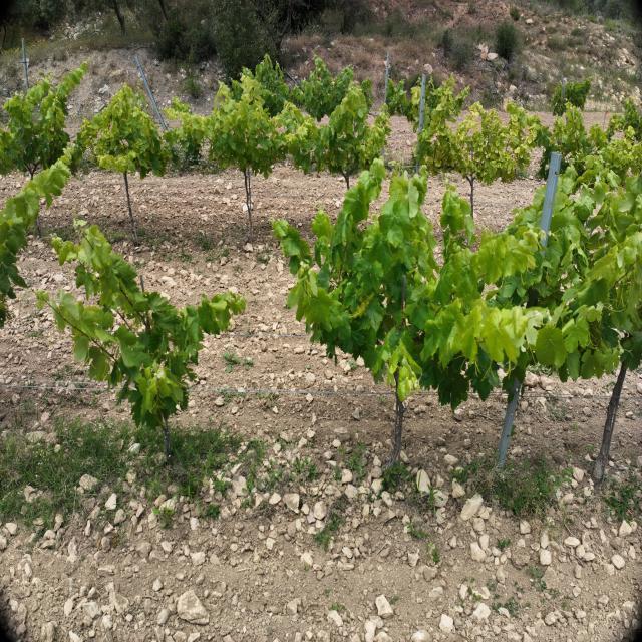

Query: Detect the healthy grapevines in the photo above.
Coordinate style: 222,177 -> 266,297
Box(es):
530,156 -> 642,490
25,194 -> 252,480
269,167 -> 550,500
